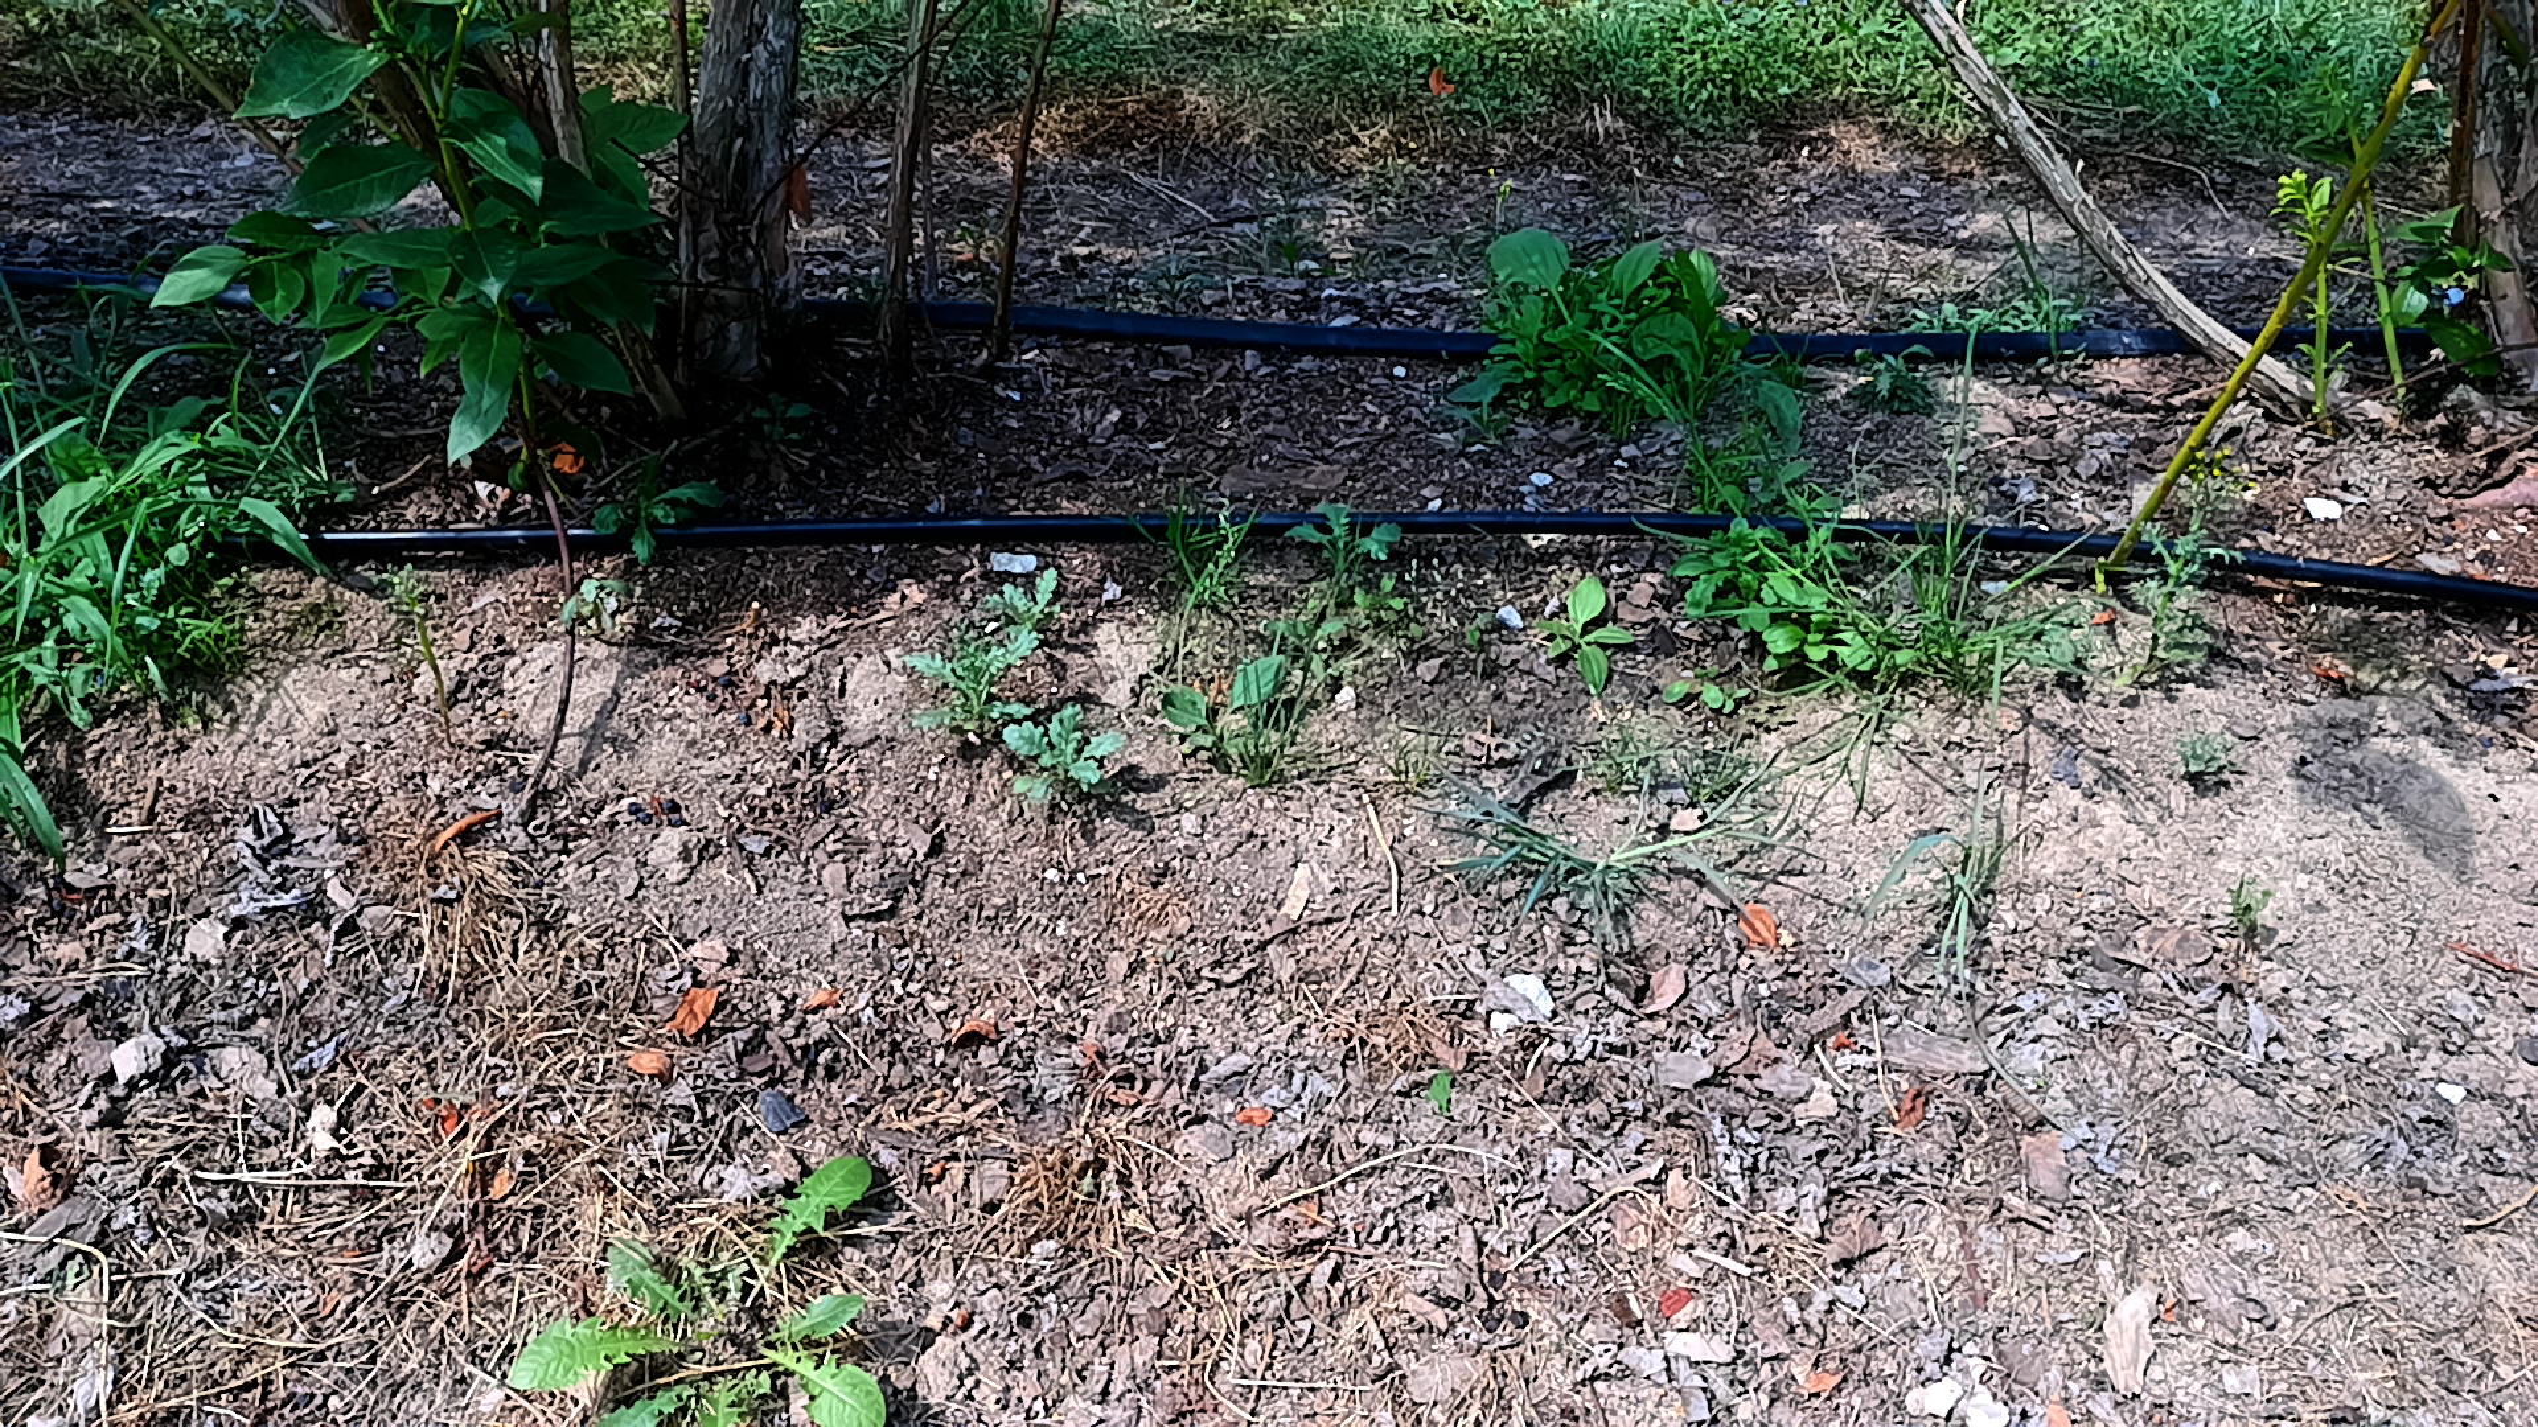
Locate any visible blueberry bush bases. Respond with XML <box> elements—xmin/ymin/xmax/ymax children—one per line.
<box><xmin>358</xmin><ymin>58</ymin><xmax>970</xmax><ymax>577</ymax></box>
<box><xmin>2238</xmin><ymin>81</ymin><xmax>2538</xmax><ymax>532</ymax></box>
